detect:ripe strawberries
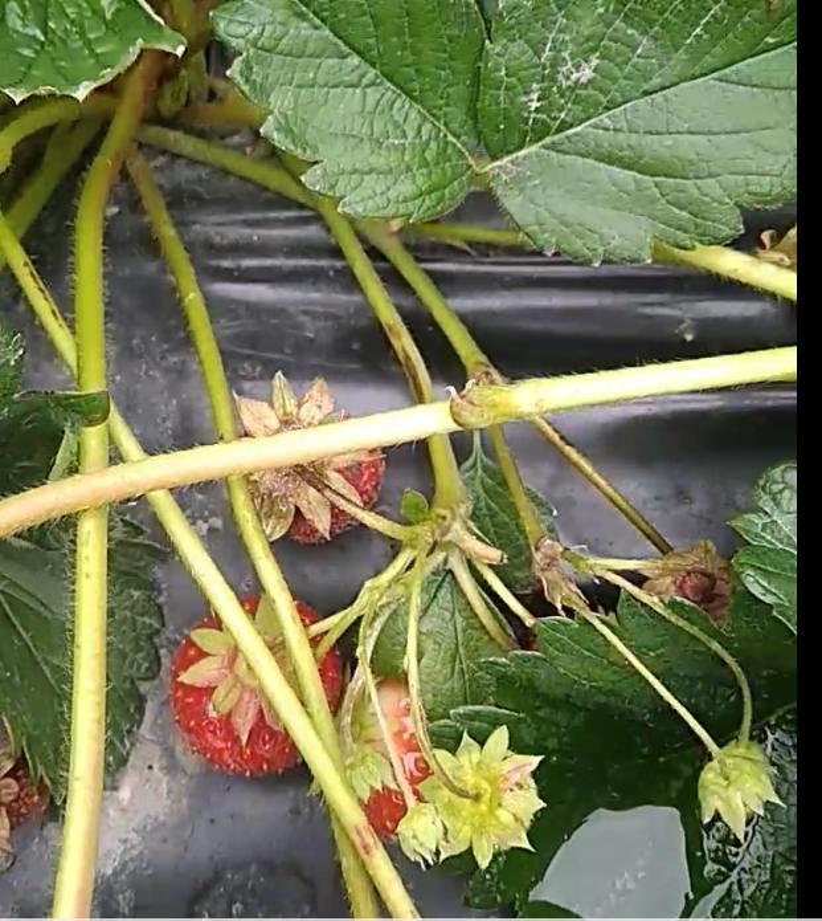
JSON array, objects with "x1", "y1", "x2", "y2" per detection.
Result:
[
  {"x1": 351, "y1": 681, "x2": 456, "y2": 840},
  {"x1": 170, "y1": 594, "x2": 331, "y2": 785}
]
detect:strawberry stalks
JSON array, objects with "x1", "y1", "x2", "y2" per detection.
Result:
[
  {"x1": 260, "y1": 428, "x2": 368, "y2": 517},
  {"x1": 256, "y1": 603, "x2": 345, "y2": 681}
]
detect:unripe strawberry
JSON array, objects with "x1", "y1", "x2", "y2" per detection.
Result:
[{"x1": 230, "y1": 396, "x2": 386, "y2": 545}]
